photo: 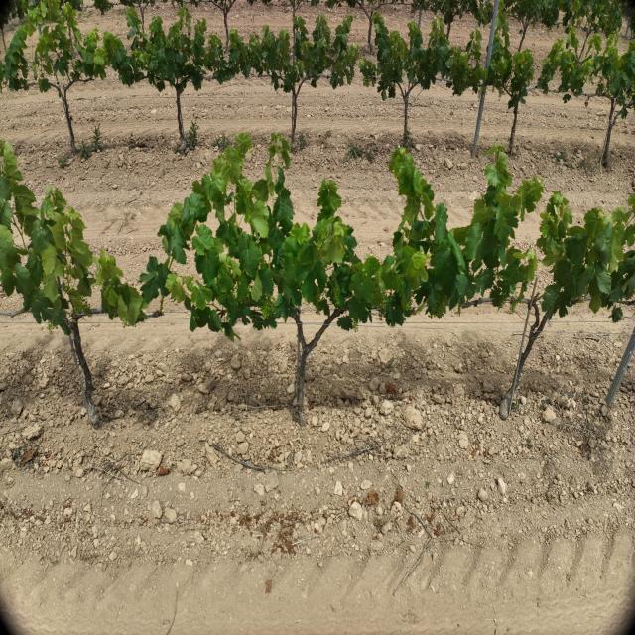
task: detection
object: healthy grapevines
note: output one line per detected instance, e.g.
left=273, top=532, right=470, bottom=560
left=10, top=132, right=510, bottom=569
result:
left=131, top=129, right=458, bottom=437
left=450, top=154, right=635, bottom=432
left=0, top=146, right=169, bottom=444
